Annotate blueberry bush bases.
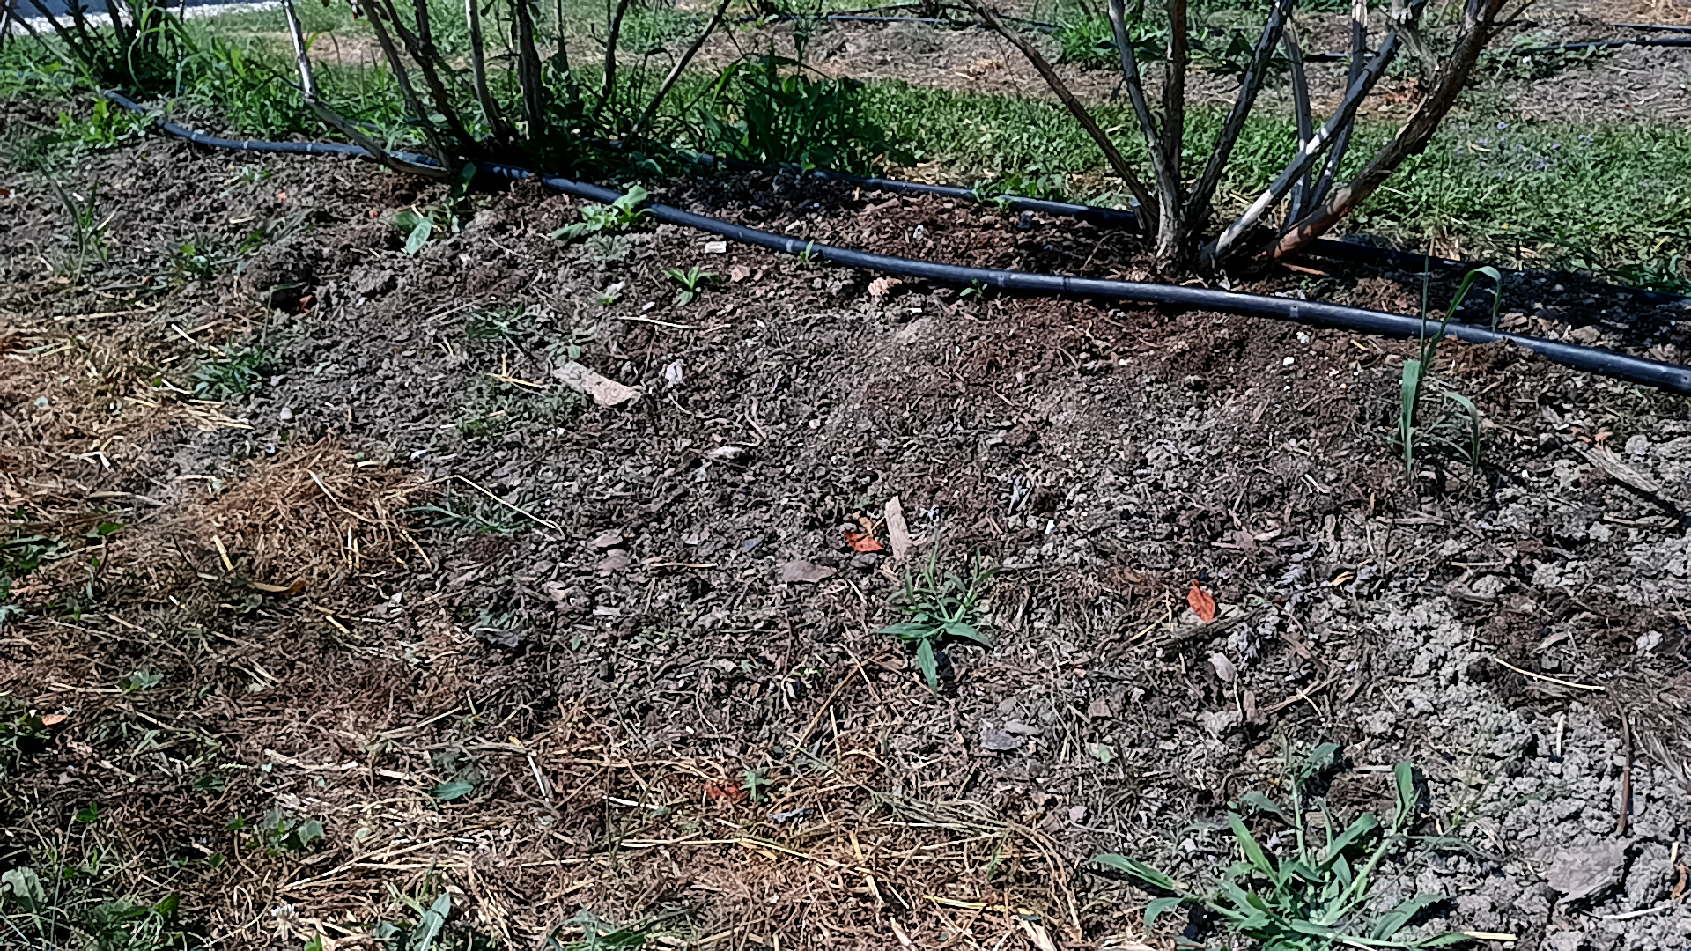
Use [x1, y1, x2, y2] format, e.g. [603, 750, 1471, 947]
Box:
[1072, 112, 1431, 323]
[29, 7, 200, 142]
[367, 65, 691, 228]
